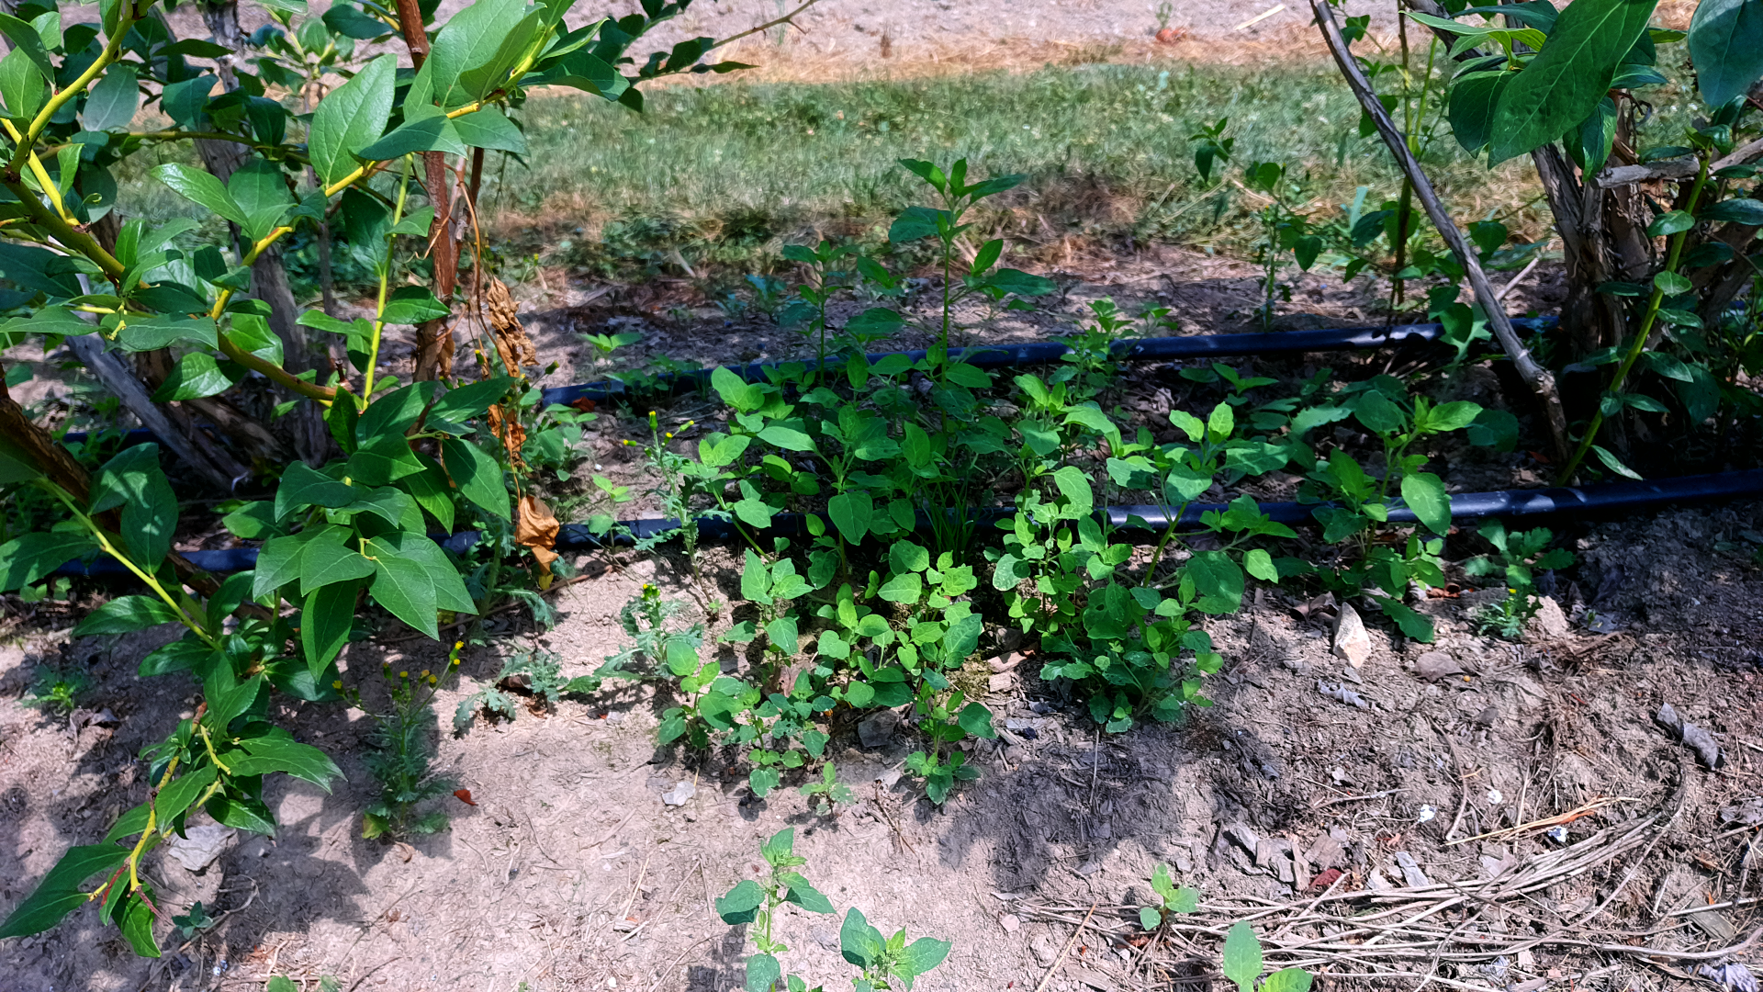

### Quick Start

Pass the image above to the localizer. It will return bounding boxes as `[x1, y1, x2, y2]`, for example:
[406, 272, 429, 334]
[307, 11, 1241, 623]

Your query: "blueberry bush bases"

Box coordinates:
[13, 230, 499, 679]
[1404, 178, 1763, 548]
